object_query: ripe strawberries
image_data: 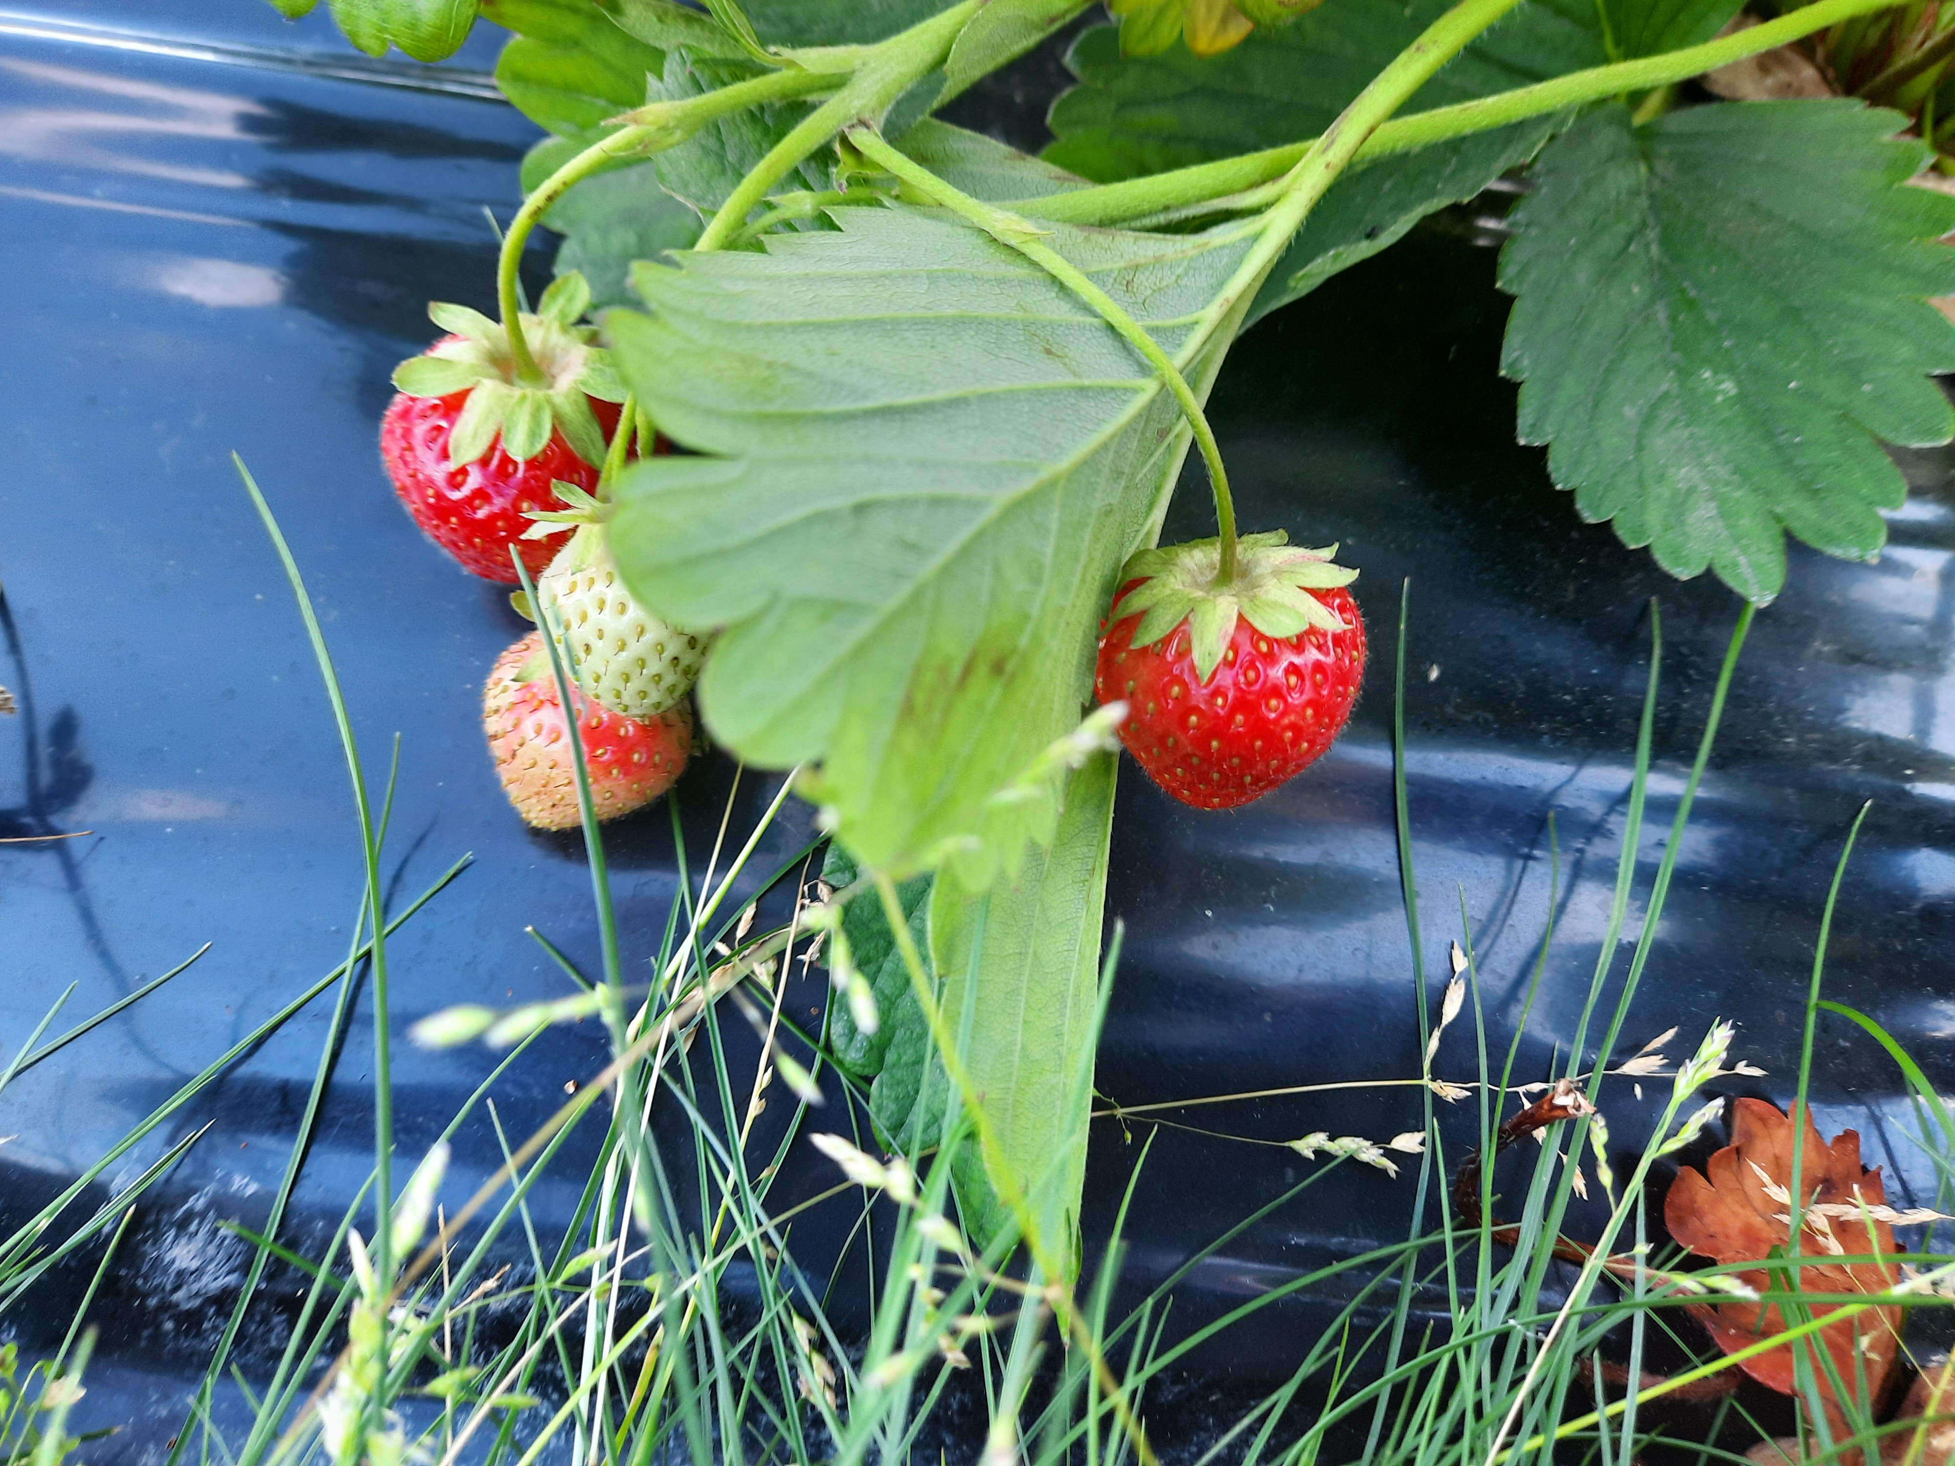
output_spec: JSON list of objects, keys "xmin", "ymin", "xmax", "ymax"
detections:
[
  {"xmin": 1098, "ymin": 531, "xmax": 1388, "ymax": 801},
  {"xmin": 370, "ymin": 342, "xmax": 633, "ymax": 551}
]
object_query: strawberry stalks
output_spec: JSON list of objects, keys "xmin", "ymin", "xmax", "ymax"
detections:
[
  {"xmin": 464, "ymin": 92, "xmax": 677, "ymax": 411},
  {"xmin": 1075, "ymin": 243, "xmax": 1275, "ymax": 634}
]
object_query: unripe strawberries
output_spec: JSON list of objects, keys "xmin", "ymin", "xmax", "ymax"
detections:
[
  {"xmin": 551, "ymin": 515, "xmax": 711, "ymax": 699},
  {"xmin": 477, "ymin": 668, "xmax": 684, "ymax": 841}
]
